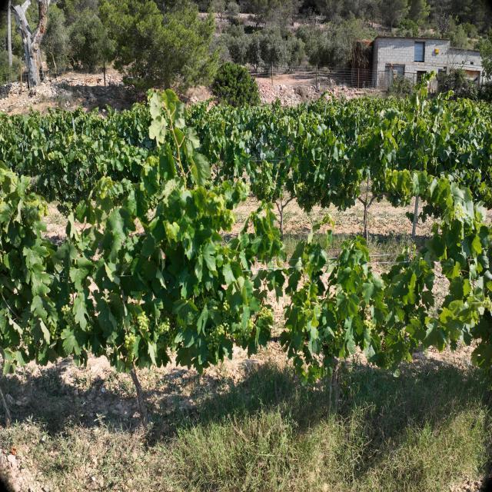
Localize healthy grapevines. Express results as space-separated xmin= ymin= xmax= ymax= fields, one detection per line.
xmin=0 ymin=152 xmax=285 ymax=459
xmin=279 ymin=234 xmax=436 ymax=441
